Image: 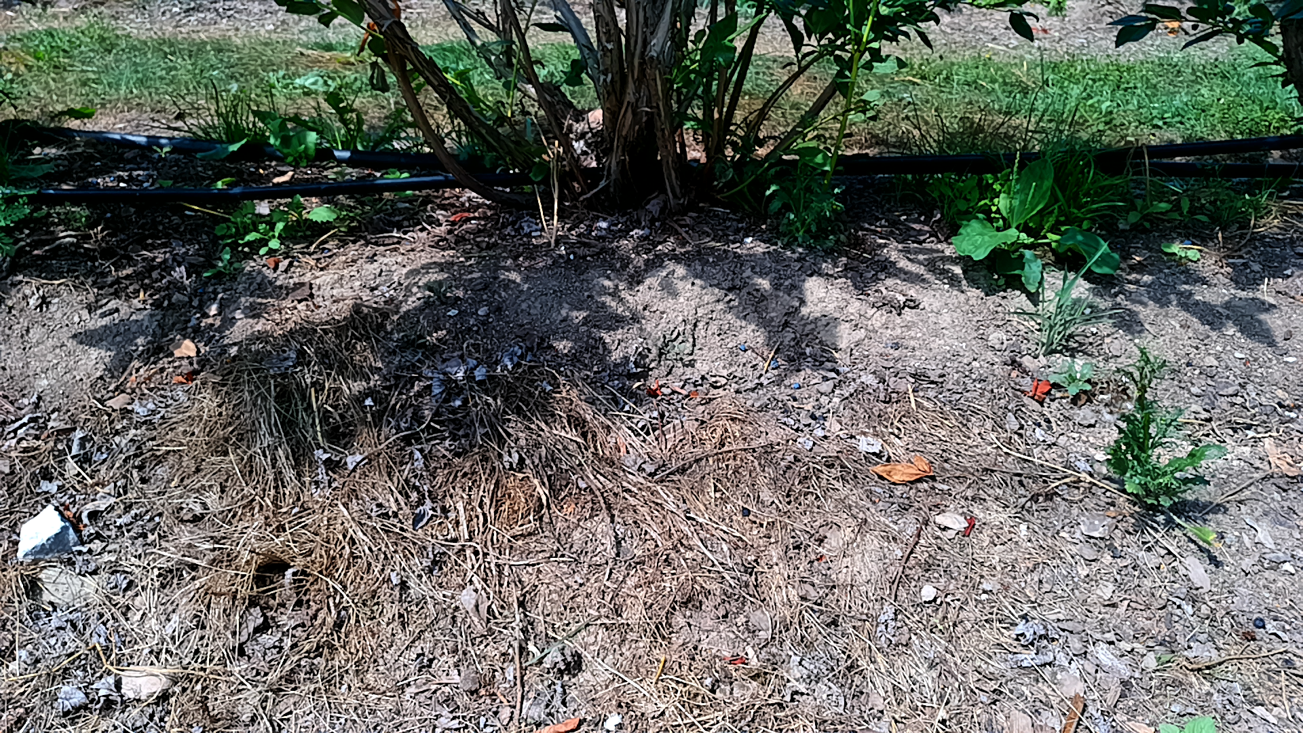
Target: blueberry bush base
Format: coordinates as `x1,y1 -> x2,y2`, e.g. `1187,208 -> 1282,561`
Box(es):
405,22 -> 835,263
